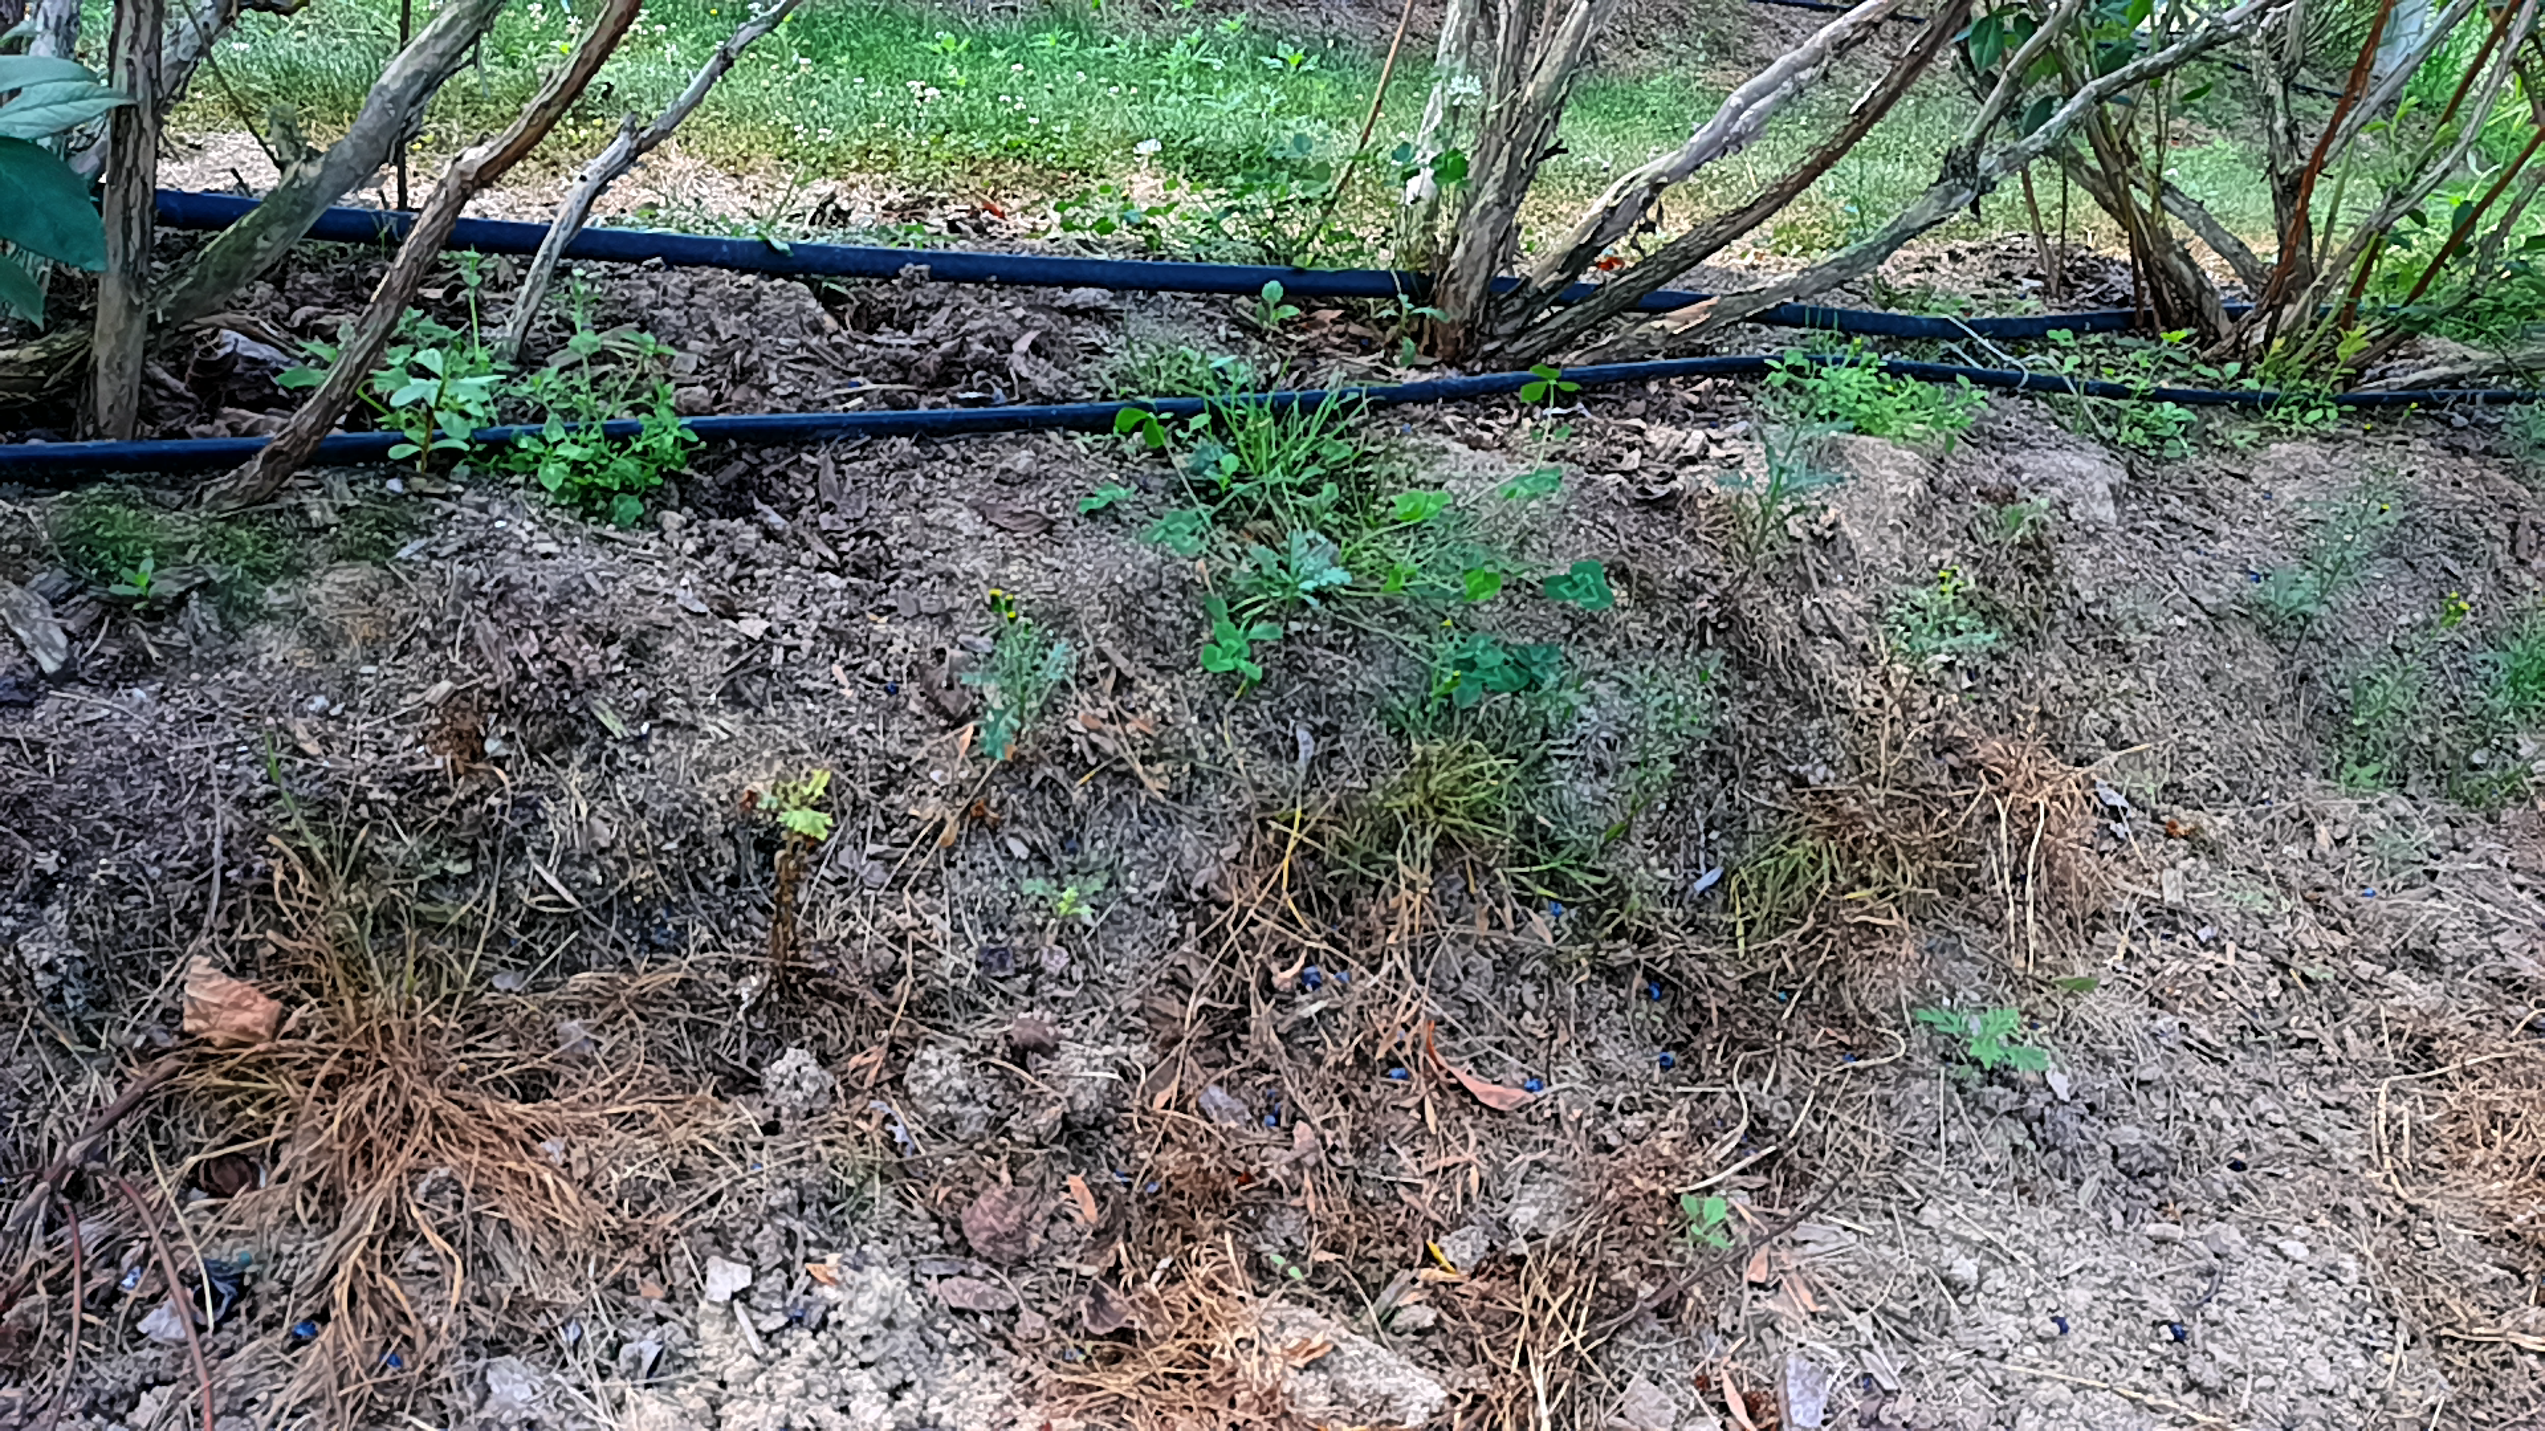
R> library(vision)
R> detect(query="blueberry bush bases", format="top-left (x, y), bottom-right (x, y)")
top-left (1309, 124), bottom-right (1847, 463)
top-left (2078, 197), bottom-right (2484, 462)
top-left (8, 80), bottom-right (724, 586)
